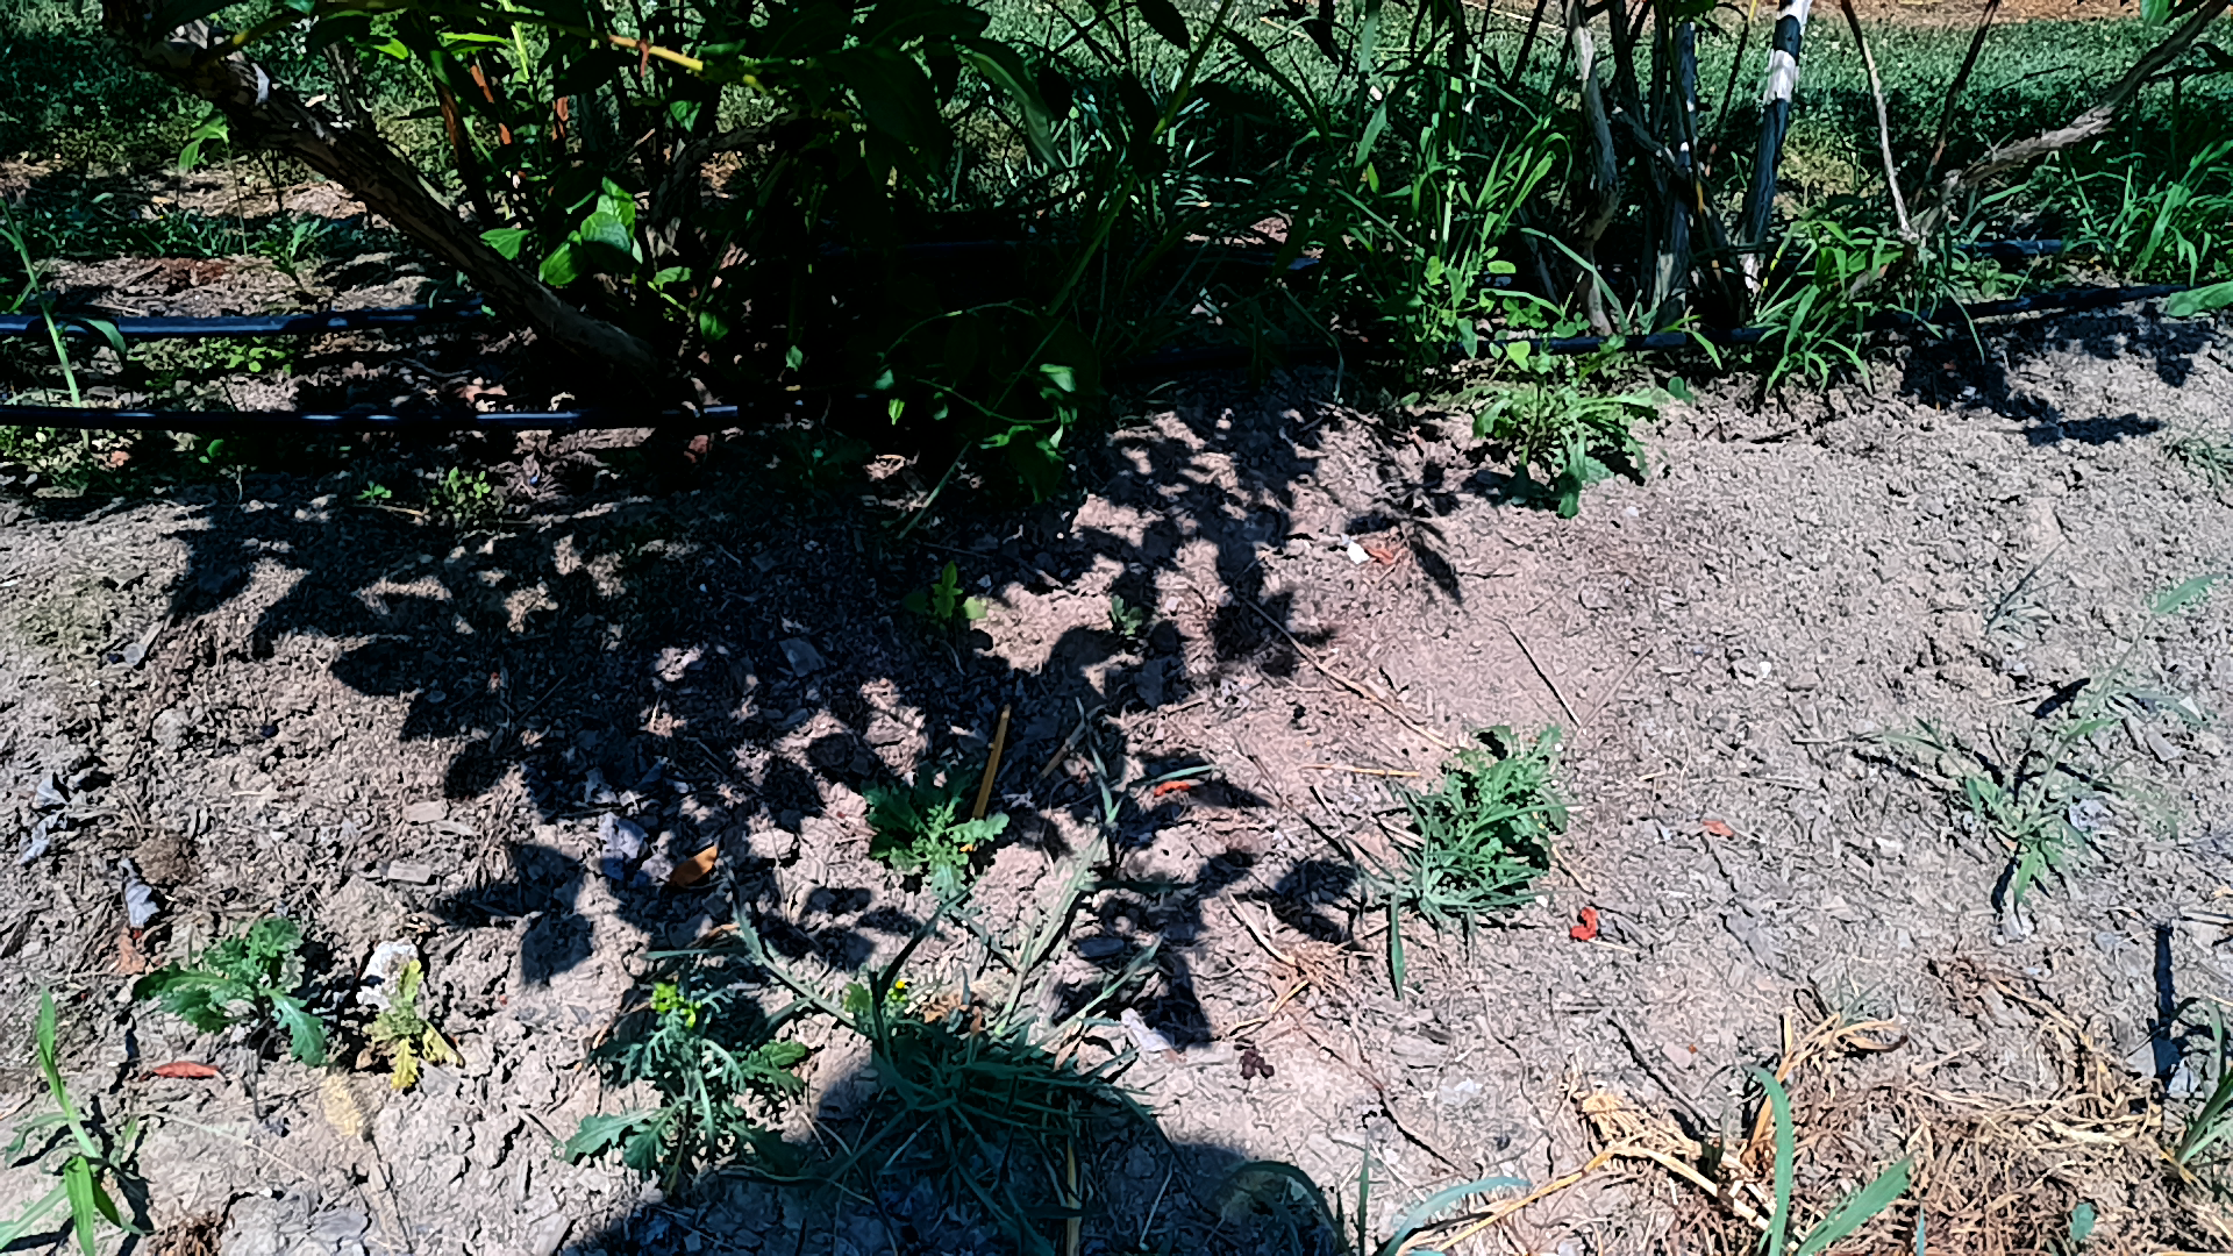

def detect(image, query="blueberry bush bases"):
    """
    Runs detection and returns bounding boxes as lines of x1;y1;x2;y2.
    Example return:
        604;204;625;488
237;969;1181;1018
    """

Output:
371;184;1036;608
1476;102;1966;492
